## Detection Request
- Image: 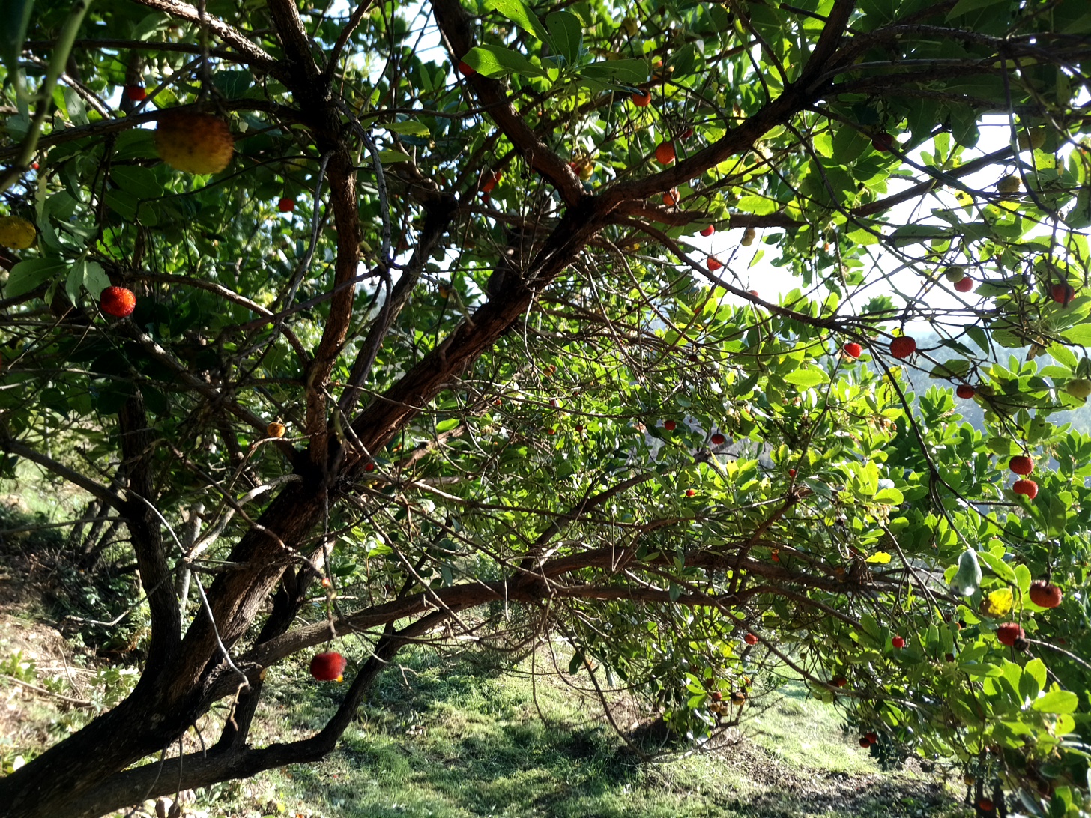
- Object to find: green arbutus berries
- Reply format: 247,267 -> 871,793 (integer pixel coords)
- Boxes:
946,266 -> 963,283
1018,125 -> 1046,151
1067,376 -> 1090,396
745,228 -> 756,238
998,175 -> 1020,194
619,17 -> 639,35
742,234 -> 753,246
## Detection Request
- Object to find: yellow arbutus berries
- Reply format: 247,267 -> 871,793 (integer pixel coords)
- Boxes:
155,108 -> 233,179
731,692 -> 745,705
964,774 -> 975,785
720,706 -> 729,716
438,286 -> 449,298
266,421 -> 286,438
543,368 -> 554,376
711,701 -> 721,712
0,217 -> 39,250
582,164 -> 594,176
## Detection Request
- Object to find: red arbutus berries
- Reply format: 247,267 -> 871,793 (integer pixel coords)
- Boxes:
656,141 -> 676,165
890,336 -> 916,358
128,84 -> 147,100
979,798 -> 994,812
701,224 -> 715,237
866,734 -> 877,744
954,277 -> 973,292
844,342 -> 863,359
309,650 -> 348,682
707,256 -> 722,272
548,429 -> 555,435
279,198 -> 295,211
771,551 -> 782,562
663,188 -> 682,207
711,434 -> 725,444
566,160 -> 580,175
100,283 -> 135,317
788,468 -> 796,477
550,400 -> 555,405
1009,455 -> 1034,475
957,384 -> 974,399
713,692 -> 722,701
745,633 -> 758,646
686,490 -> 694,496
664,419 -> 676,430
480,176 -> 496,191
892,636 -> 906,649
859,737 -> 870,749
836,677 -> 846,686
1013,479 -> 1039,499
633,88 -> 651,107
1051,283 -> 1076,303
871,133 -> 894,153
1028,579 -> 1063,609
365,463 -> 374,472
459,57 -> 477,75
997,620 -> 1025,647
575,425 -> 583,432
